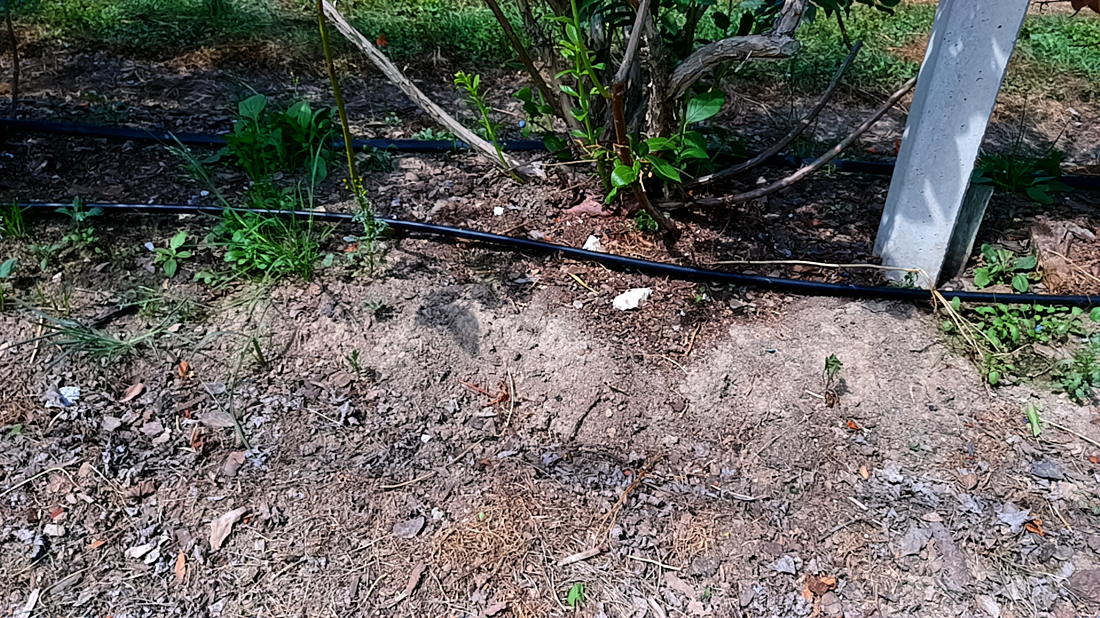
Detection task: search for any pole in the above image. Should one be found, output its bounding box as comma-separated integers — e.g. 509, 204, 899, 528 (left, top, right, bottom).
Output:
878, 19, 1008, 272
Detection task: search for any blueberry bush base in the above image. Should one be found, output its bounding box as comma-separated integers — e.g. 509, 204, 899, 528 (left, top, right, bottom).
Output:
497, 33, 880, 283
